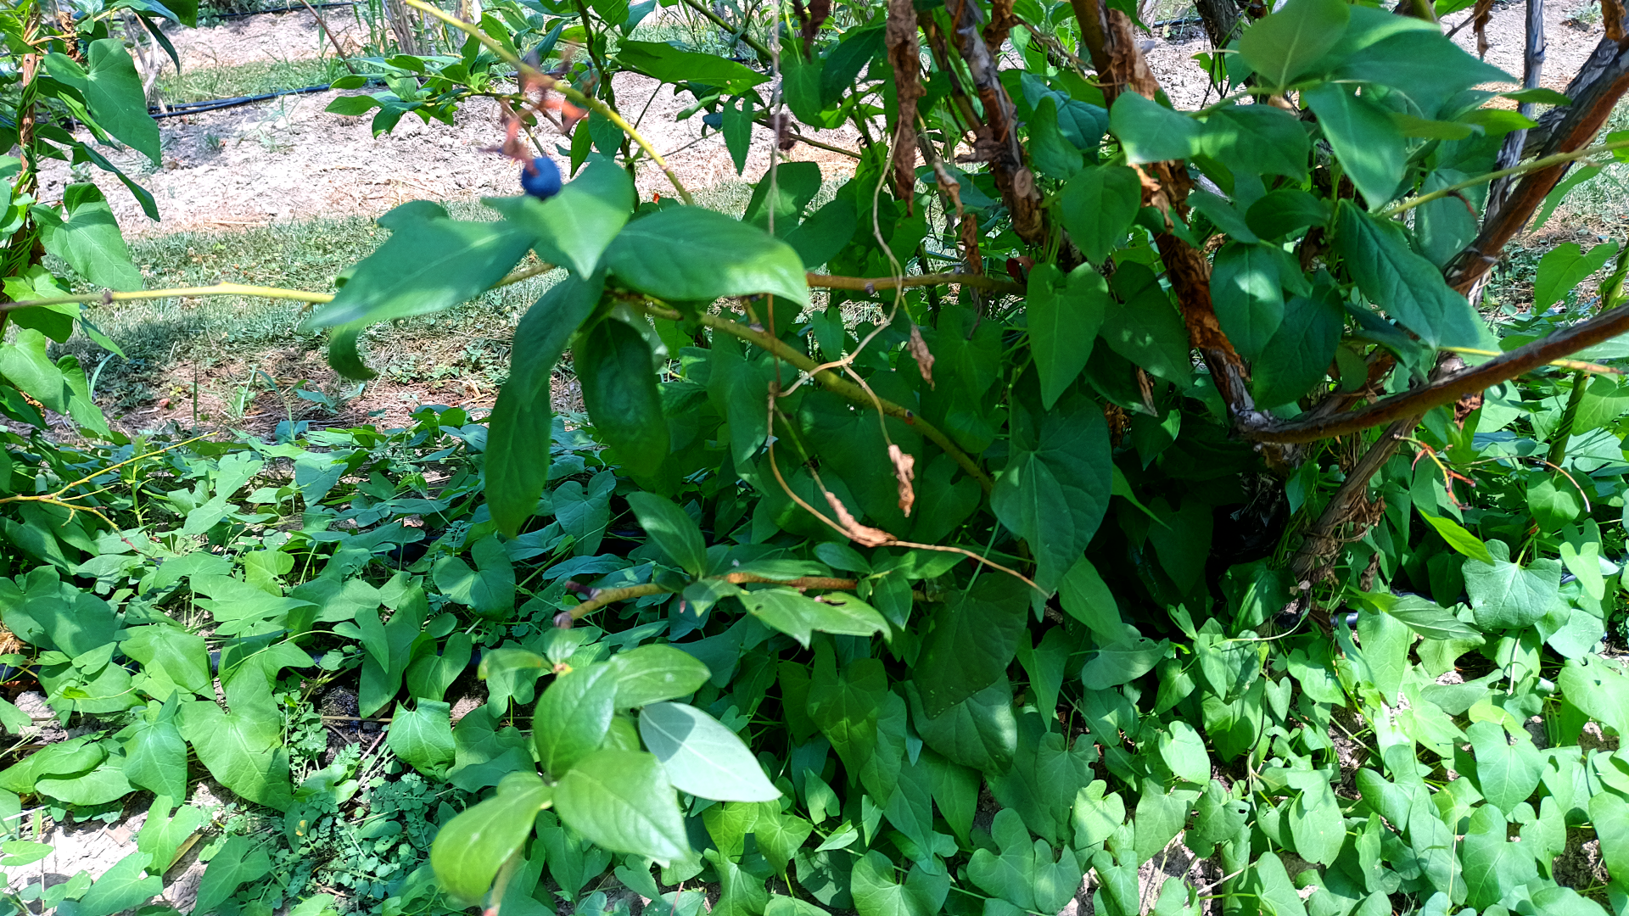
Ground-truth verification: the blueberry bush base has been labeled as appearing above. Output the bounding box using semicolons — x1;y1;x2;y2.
819;158;1628;723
